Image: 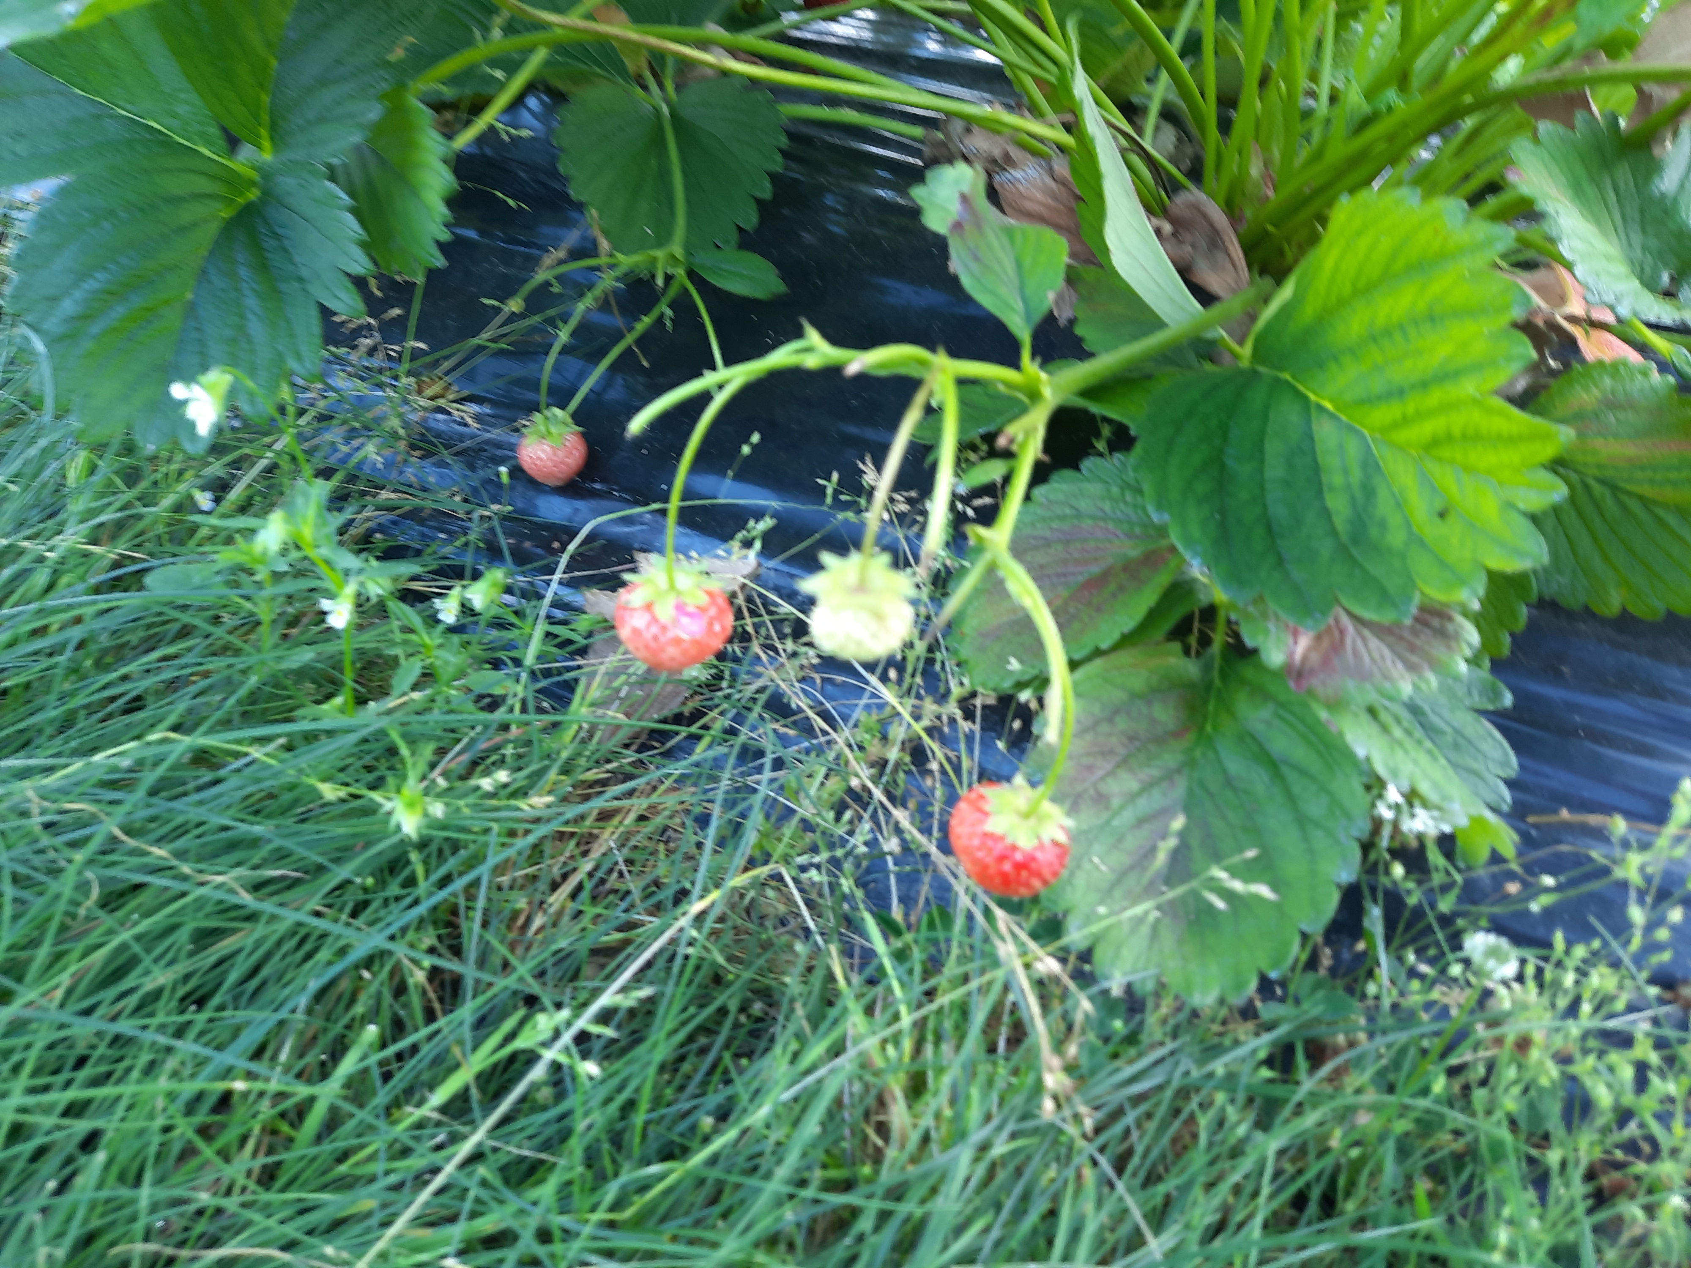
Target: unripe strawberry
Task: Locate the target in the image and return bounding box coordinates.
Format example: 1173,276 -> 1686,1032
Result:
812,580 -> 915,654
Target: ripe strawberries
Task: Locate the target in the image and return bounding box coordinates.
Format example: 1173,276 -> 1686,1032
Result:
516,422 -> 587,483
614,572 -> 738,661
948,778 -> 1070,896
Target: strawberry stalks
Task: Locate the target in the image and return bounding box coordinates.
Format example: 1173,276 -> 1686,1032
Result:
537,308 -> 590,442
839,382 -> 927,618
646,375 -> 755,612
1014,548 -> 1087,840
